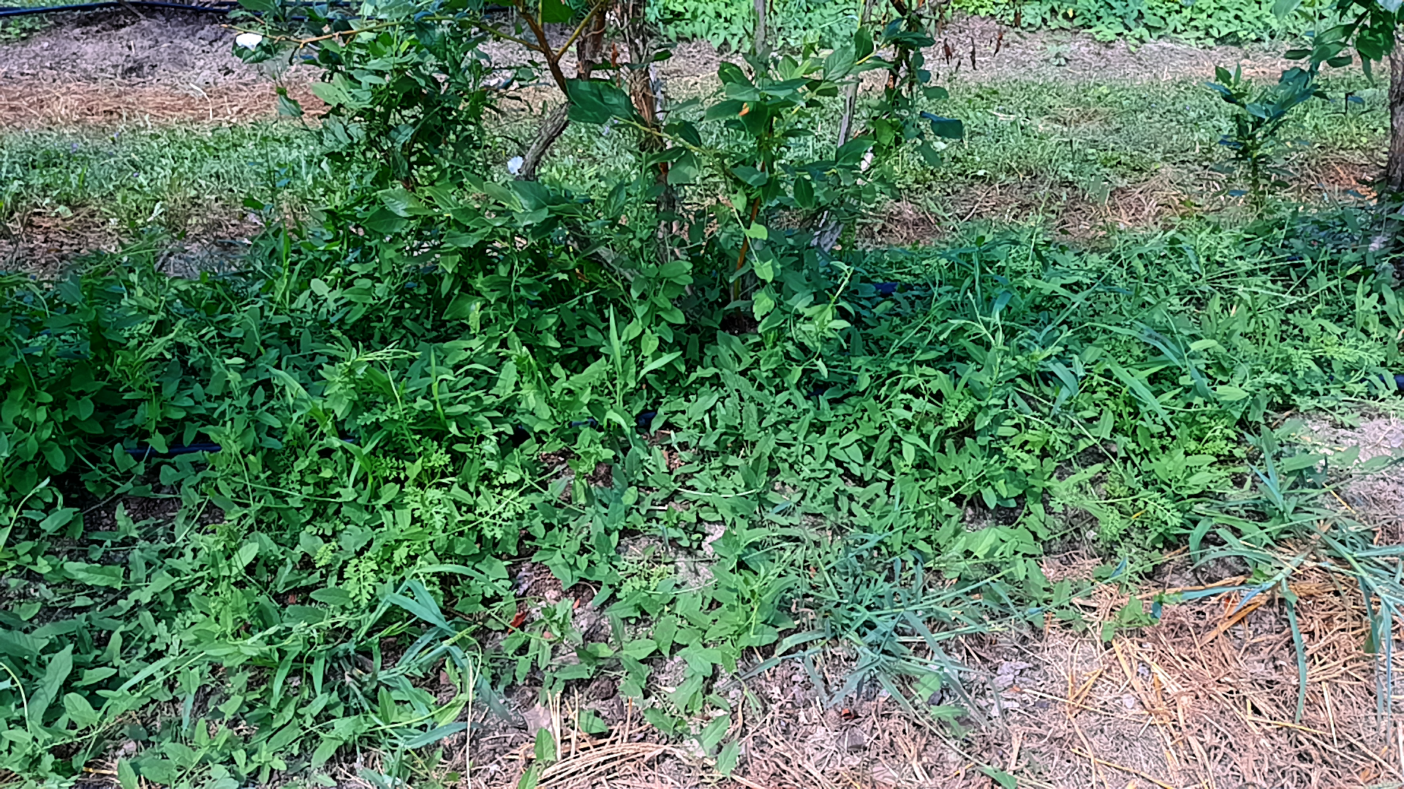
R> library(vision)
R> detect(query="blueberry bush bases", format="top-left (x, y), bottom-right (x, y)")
top-left (1309, 99), bottom-right (1404, 317)
top-left (349, 117), bottom-right (897, 411)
